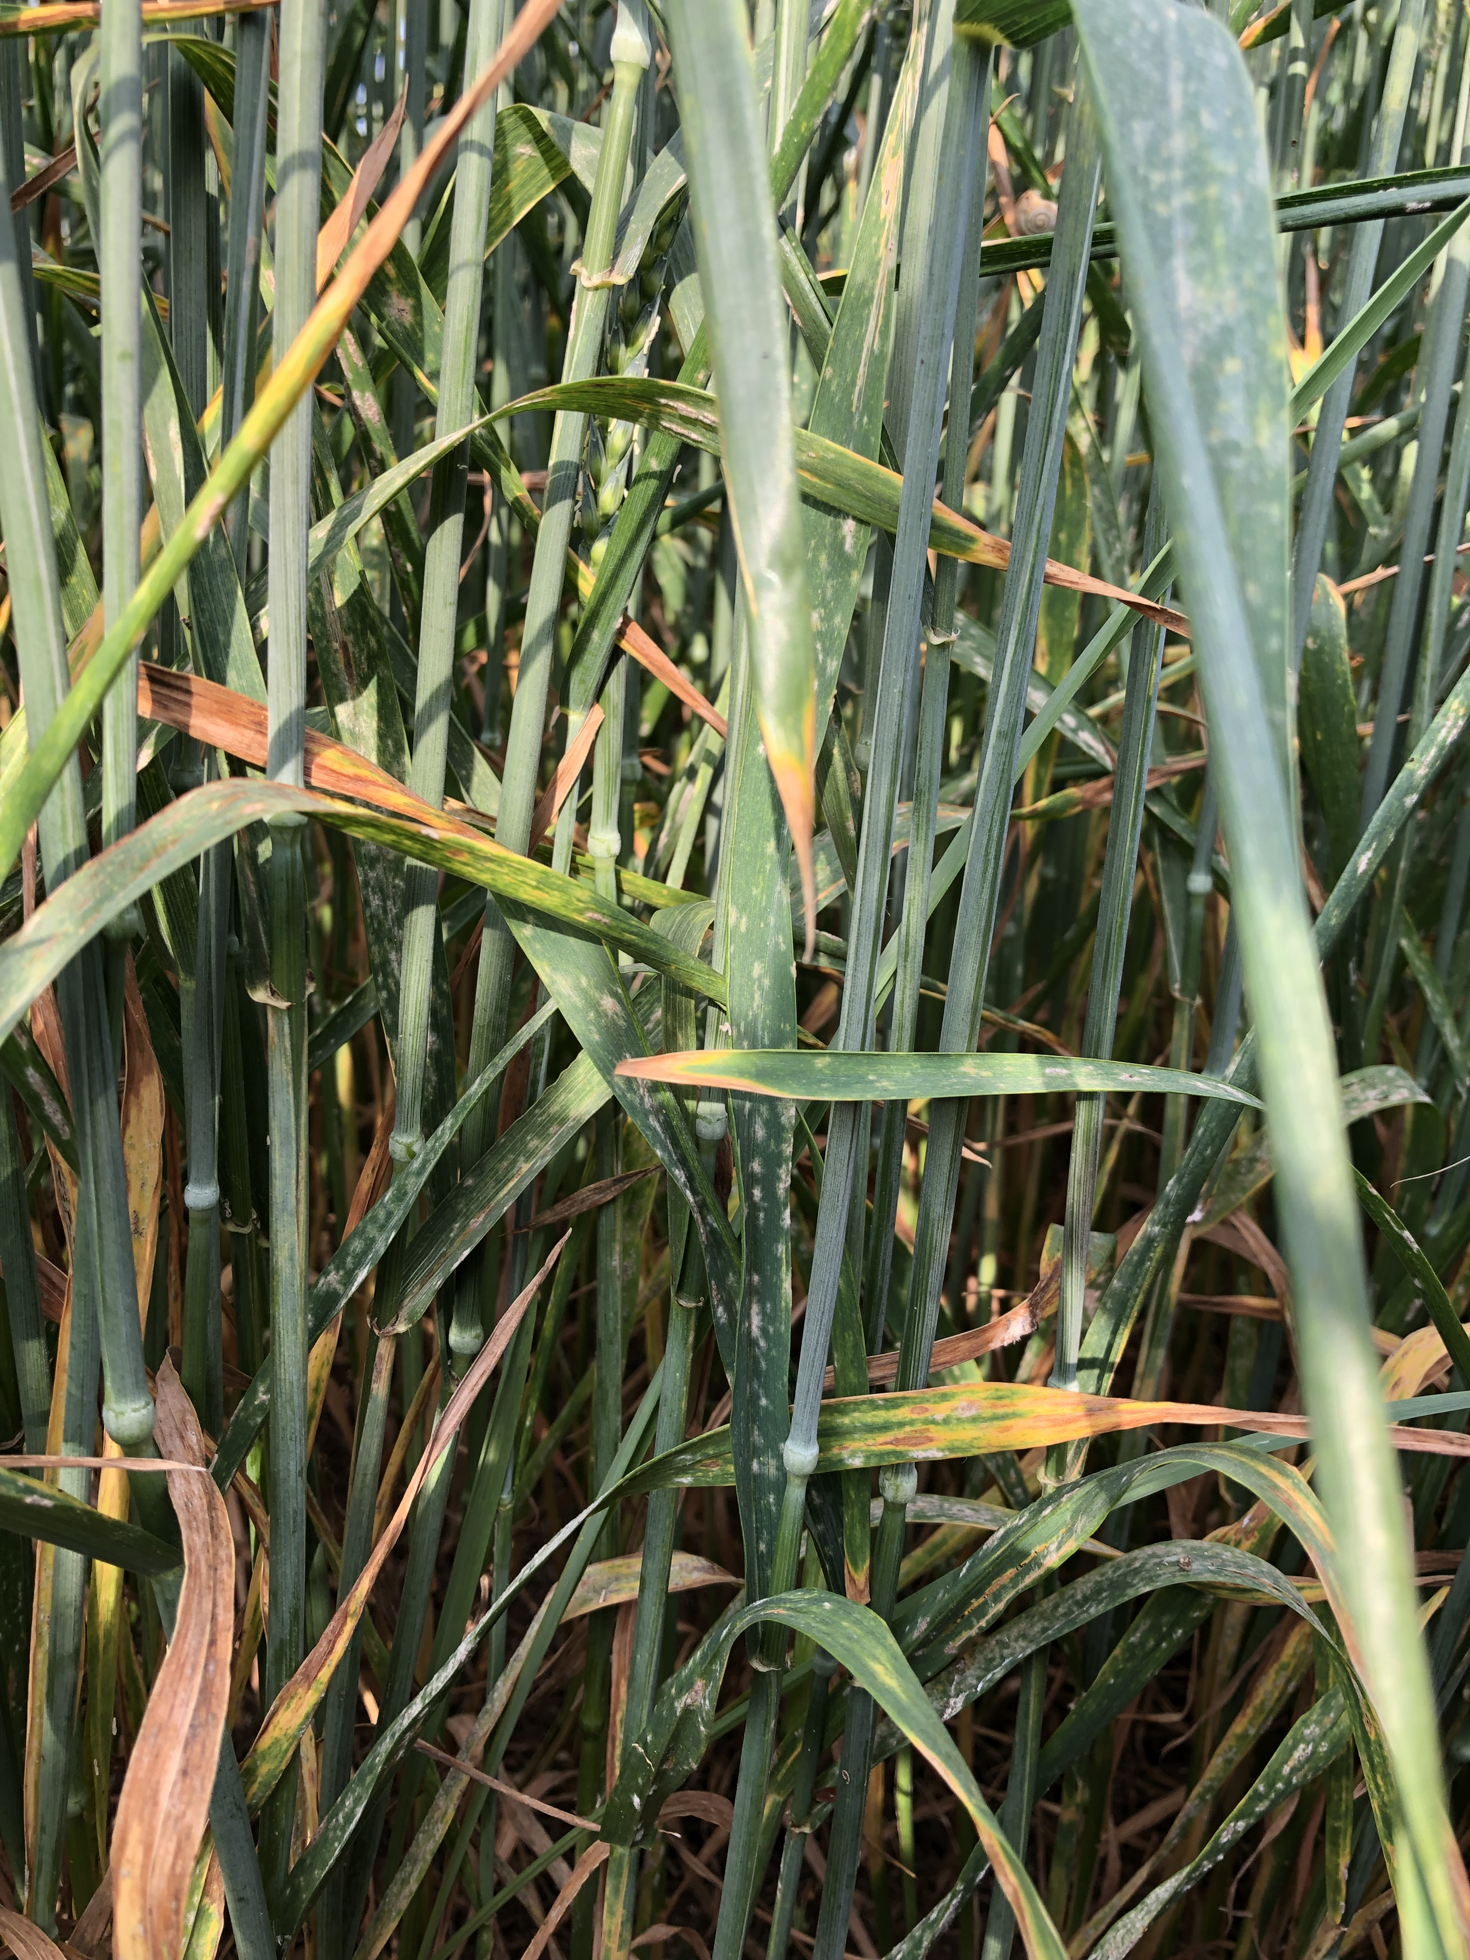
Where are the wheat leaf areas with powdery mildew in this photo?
[375,249,440,357]
[872,1859,975,1959]
[910,1527,1353,1737]
[319,1635,481,1881]
[1151,120,1334,593]
[726,1086,816,1562]
[1080,436,1153,587]
[1094,1638,1391,1956]
[526,933,756,1378]
[791,495,878,728]
[5,1027,73,1159]
[332,846,421,1003]
[540,963,756,1346]
[1104,1605,1229,1705]
[295,1057,473,1322]
[1029,673,1126,801]
[1097,466,1167,593]
[410,1124,599,1305]
[627,1619,775,1835]
[330,328,402,447]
